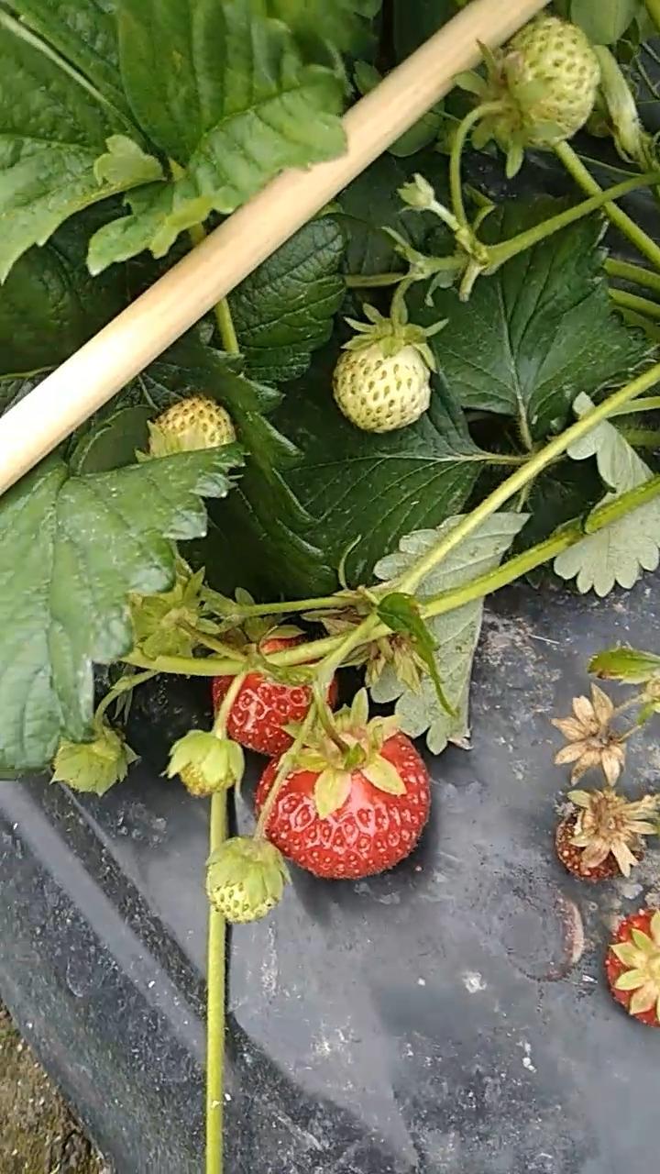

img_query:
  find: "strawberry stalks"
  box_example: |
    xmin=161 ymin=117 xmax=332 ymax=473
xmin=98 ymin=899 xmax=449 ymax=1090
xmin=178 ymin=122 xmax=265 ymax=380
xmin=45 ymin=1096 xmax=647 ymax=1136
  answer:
xmin=196 ymin=681 xmax=249 ymax=749
xmin=302 ymin=683 xmax=372 ymax=779
xmin=582 ymin=777 xmax=660 ymax=837
xmin=449 ymin=81 xmax=521 ymax=147
xmin=383 ymin=249 xmax=421 ymax=349
xmin=234 ymin=813 xmax=283 ymax=870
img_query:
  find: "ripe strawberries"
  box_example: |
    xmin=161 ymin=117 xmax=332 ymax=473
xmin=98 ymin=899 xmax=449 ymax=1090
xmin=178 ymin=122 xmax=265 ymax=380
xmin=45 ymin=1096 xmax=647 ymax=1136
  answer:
xmin=251 ymin=738 xmax=434 ymax=881
xmin=213 ymin=638 xmax=327 ymax=750
xmin=610 ymin=903 xmax=660 ymax=1033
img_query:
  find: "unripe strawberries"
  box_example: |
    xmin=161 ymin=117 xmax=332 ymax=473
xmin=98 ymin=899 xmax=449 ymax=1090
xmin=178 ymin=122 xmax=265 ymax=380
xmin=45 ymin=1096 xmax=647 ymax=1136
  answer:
xmin=330 ymin=327 xmax=435 ymax=433
xmin=555 ymin=802 xmax=640 ymax=880
xmin=177 ymin=733 xmax=234 ymax=798
xmin=207 ymin=844 xmax=282 ymax=925
xmin=475 ymin=18 xmax=603 ymax=144
xmin=144 ymin=396 xmax=237 ymax=454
